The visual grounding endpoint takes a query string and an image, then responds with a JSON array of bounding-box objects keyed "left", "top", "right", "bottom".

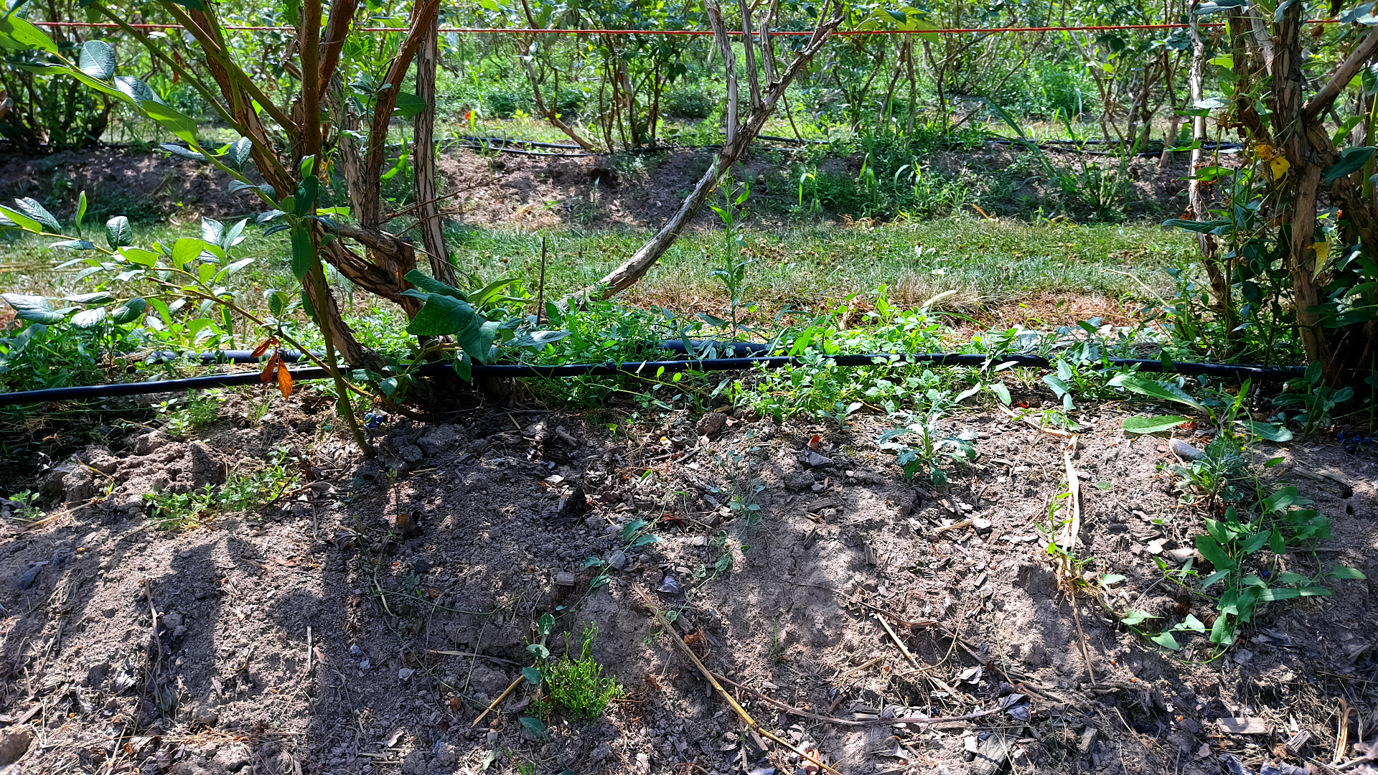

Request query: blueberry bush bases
[
  {"left": 1091, "top": 101, "right": 1189, "bottom": 182},
  {"left": 547, "top": 93, "right": 680, "bottom": 189},
  {"left": 4, "top": 85, "right": 99, "bottom": 180},
  {"left": 1179, "top": 198, "right": 1378, "bottom": 459},
  {"left": 831, "top": 110, "right": 961, "bottom": 155},
  {"left": 273, "top": 224, "right": 667, "bottom": 455}
]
